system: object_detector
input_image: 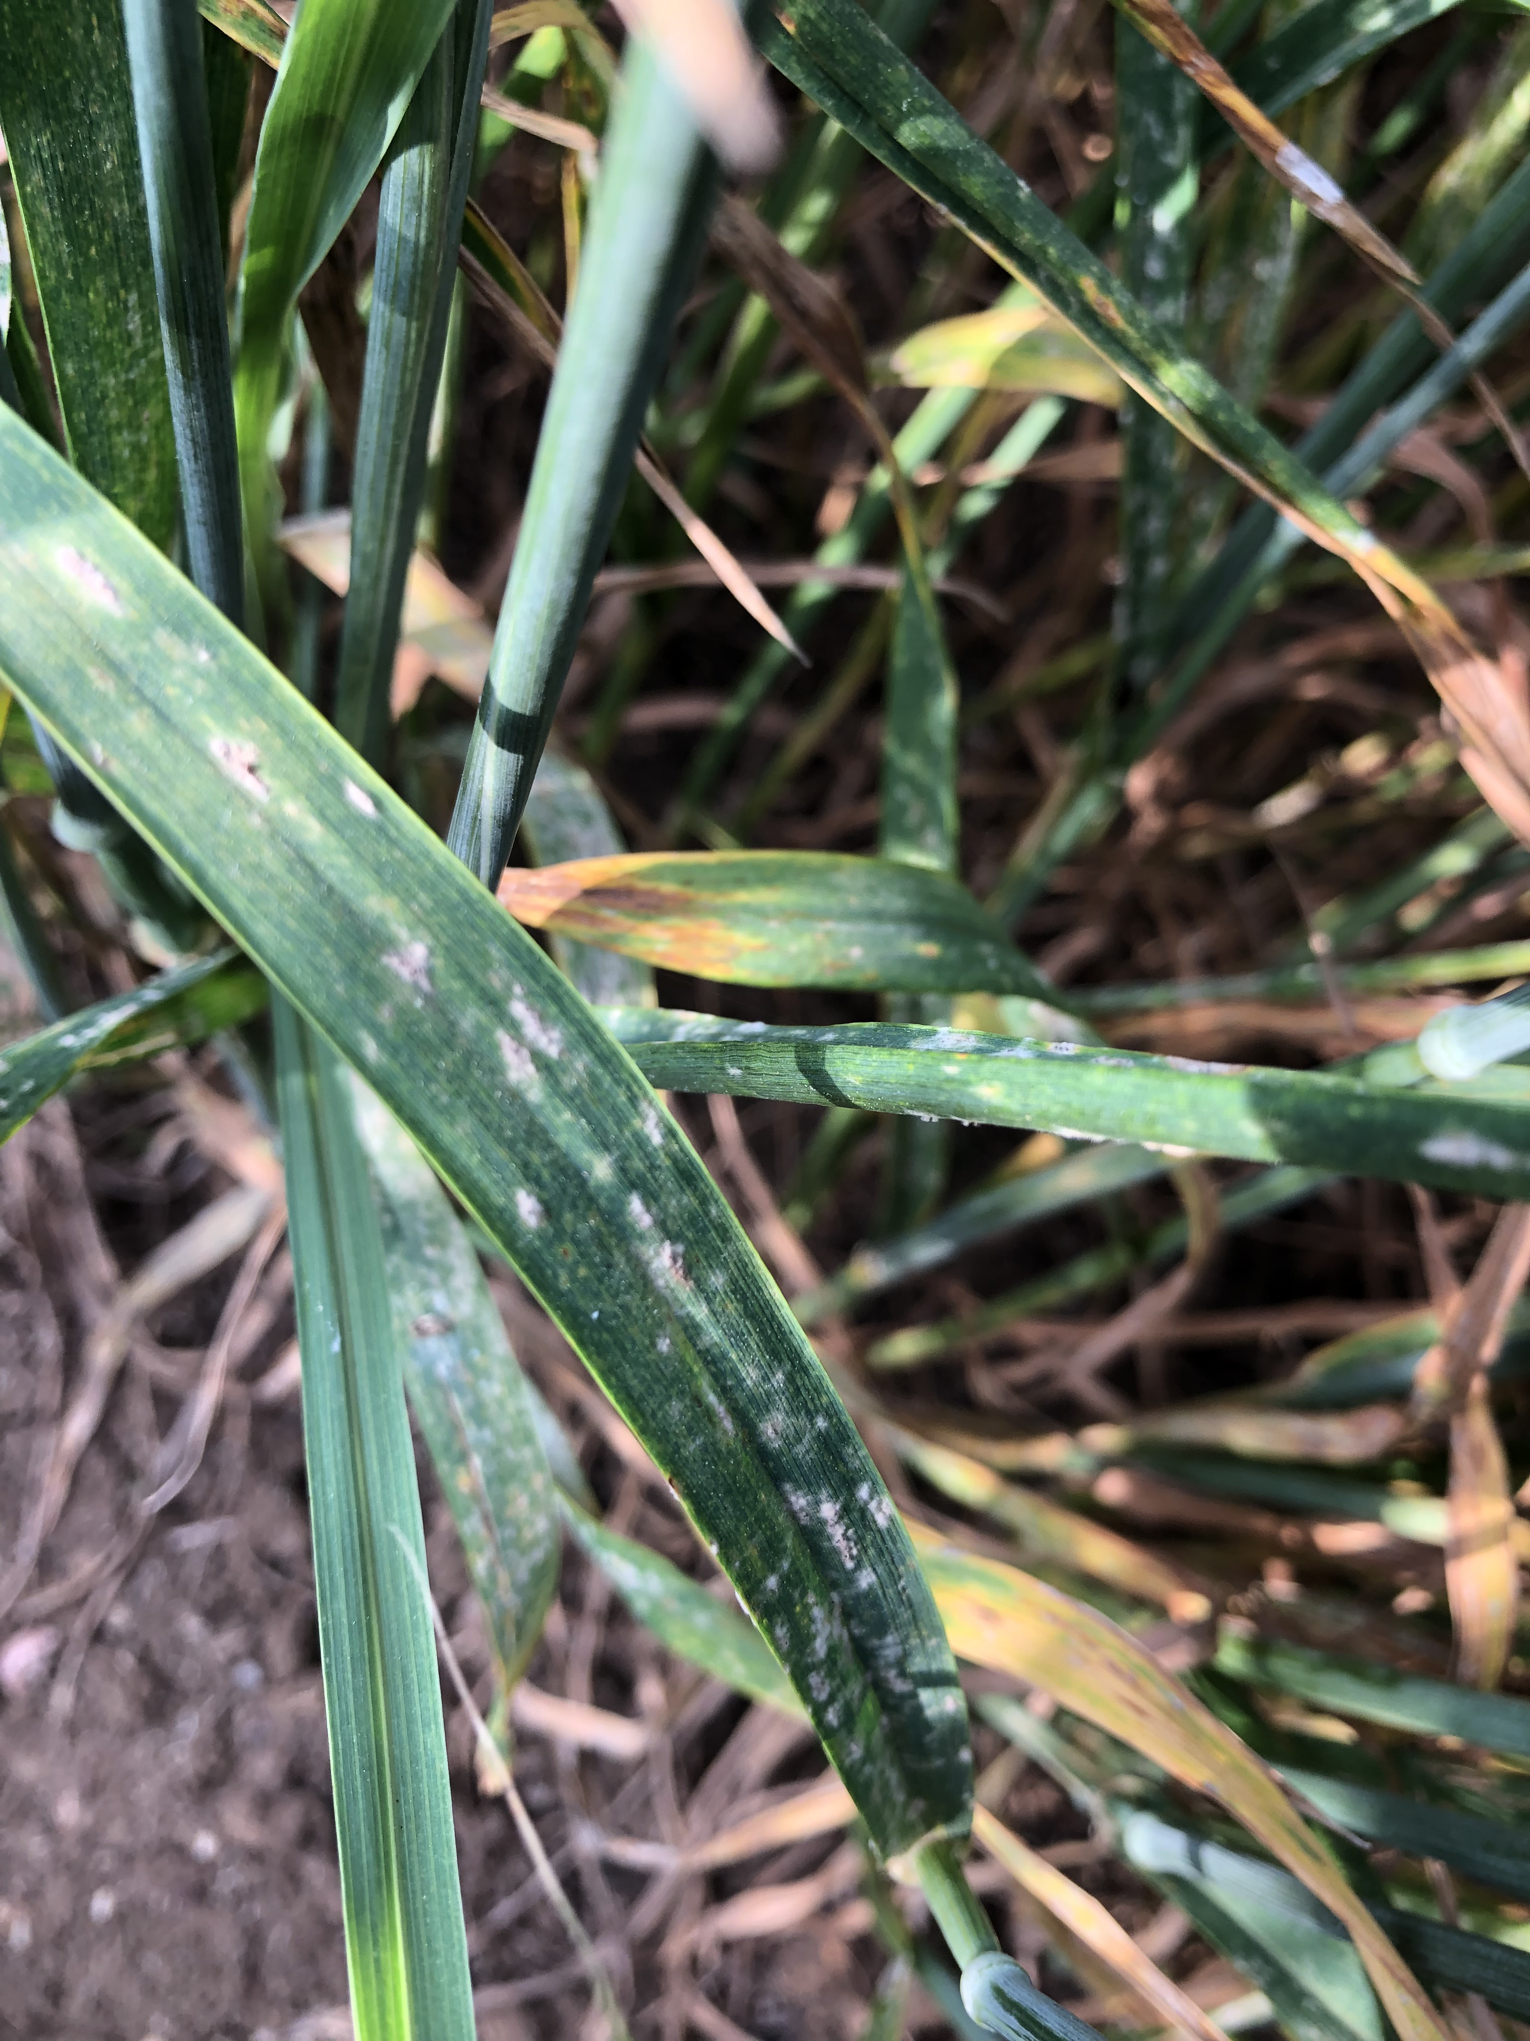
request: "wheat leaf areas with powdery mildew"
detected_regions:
[14,502,1015,1823]
[343,1104,604,1666]
[31,963,202,1143]
[1372,1087,1521,1219]
[689,994,1282,1165]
